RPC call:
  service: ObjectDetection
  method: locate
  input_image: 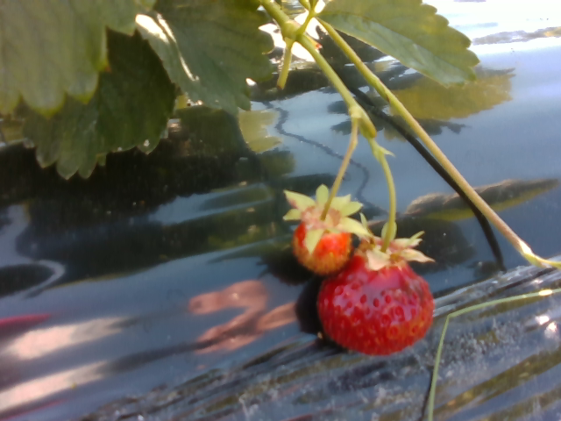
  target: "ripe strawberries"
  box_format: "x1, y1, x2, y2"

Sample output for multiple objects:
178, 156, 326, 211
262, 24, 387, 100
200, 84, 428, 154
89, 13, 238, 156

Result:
292, 207, 350, 270
317, 249, 441, 356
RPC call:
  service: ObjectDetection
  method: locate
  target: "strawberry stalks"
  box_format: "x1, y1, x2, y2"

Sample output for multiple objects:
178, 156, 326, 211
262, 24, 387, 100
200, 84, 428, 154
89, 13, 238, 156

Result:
315, 156, 350, 226
377, 171, 397, 270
